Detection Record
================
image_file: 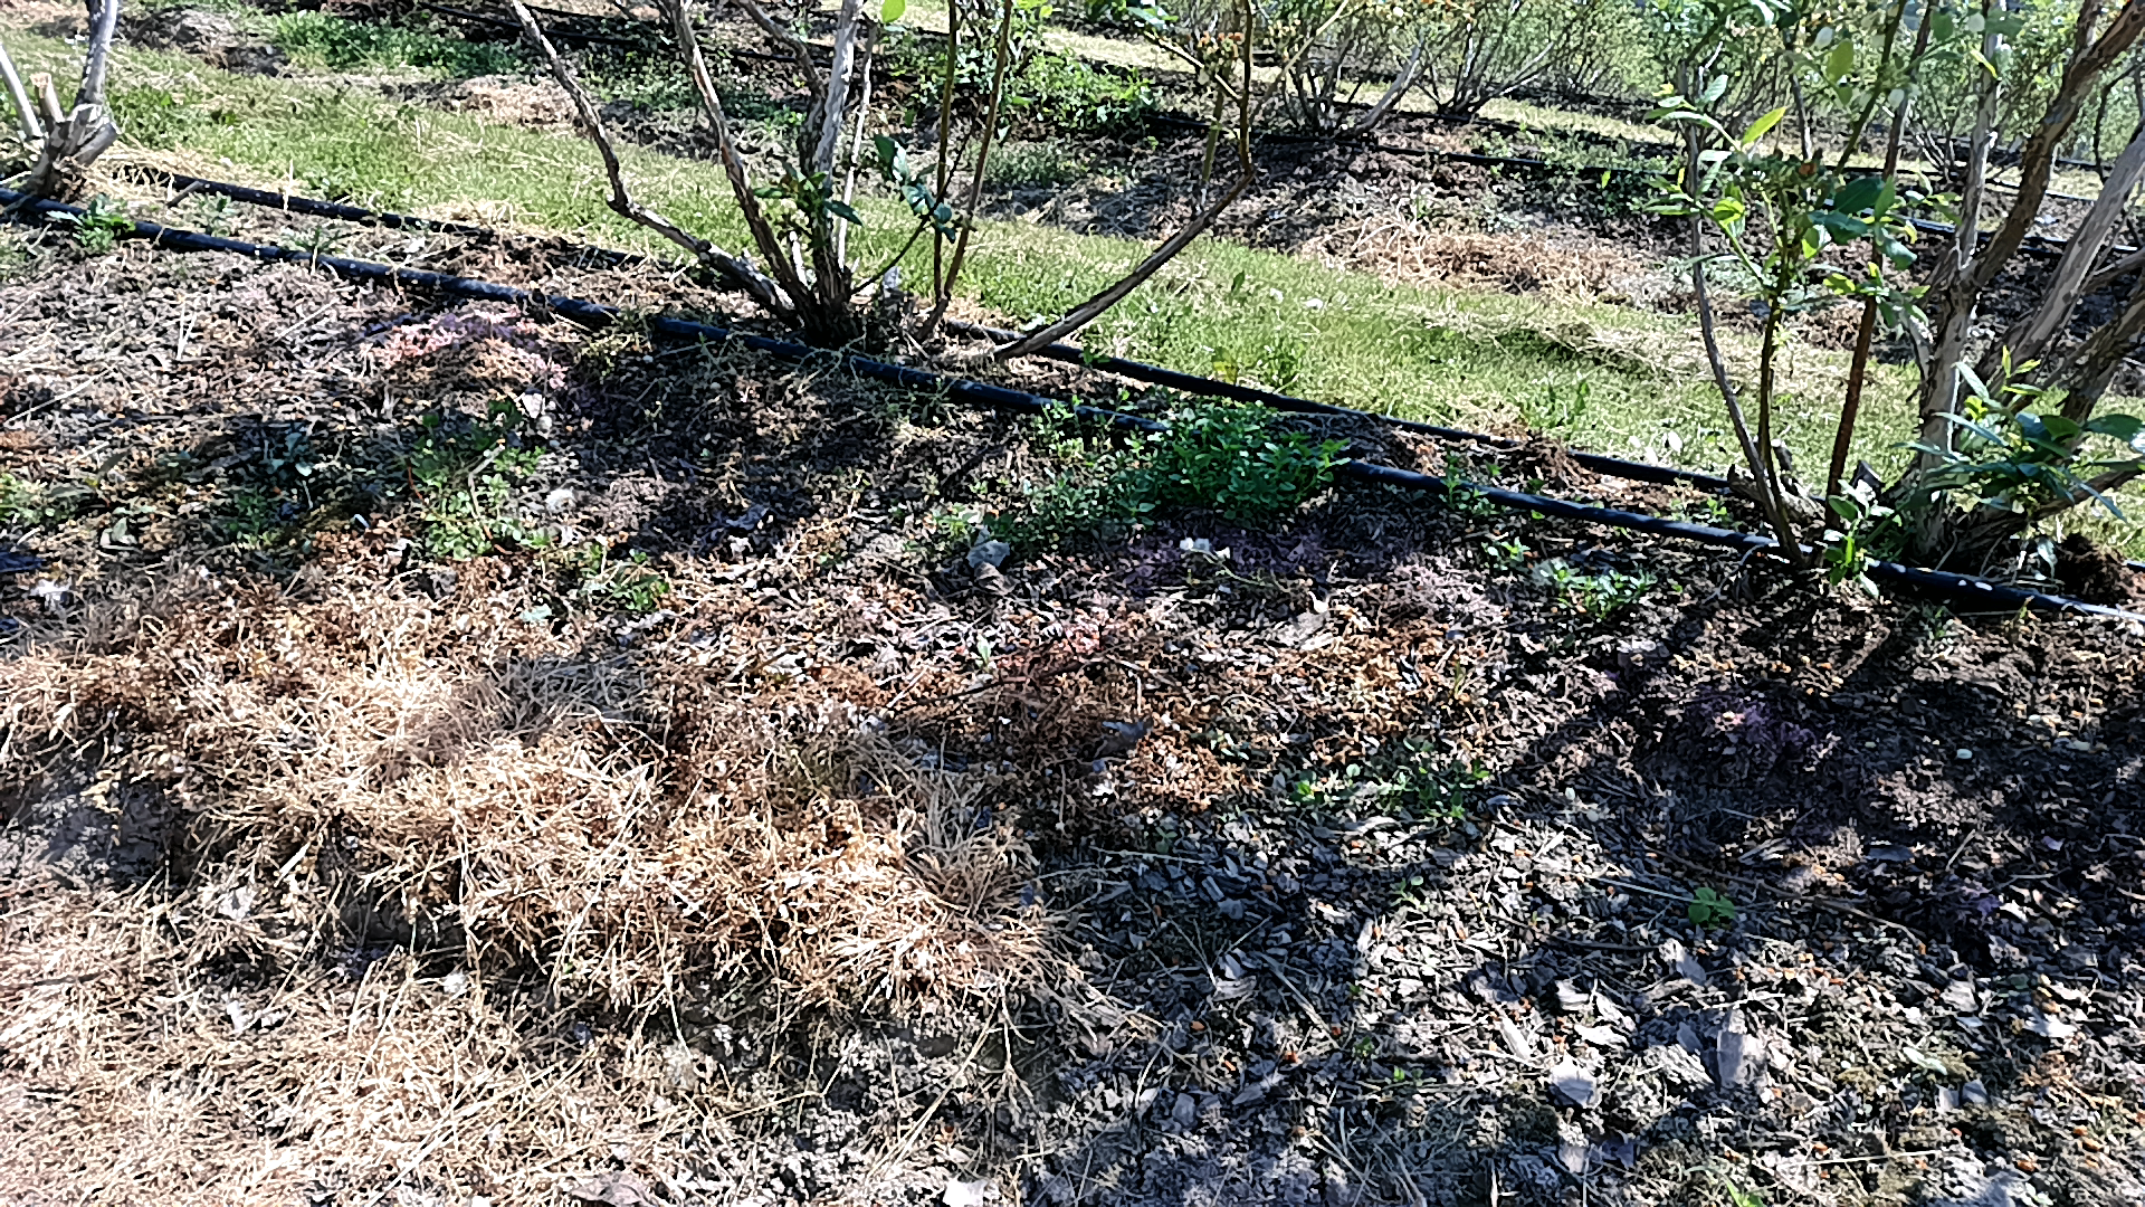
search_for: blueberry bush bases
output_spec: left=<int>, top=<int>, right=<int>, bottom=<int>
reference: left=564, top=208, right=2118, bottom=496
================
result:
left=687, top=199, right=989, bottom=390
left=1680, top=333, right=2101, bottom=676
left=2, top=75, right=128, bottom=240
left=1431, top=67, right=1495, bottom=133
left=1262, top=67, right=1373, bottom=154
